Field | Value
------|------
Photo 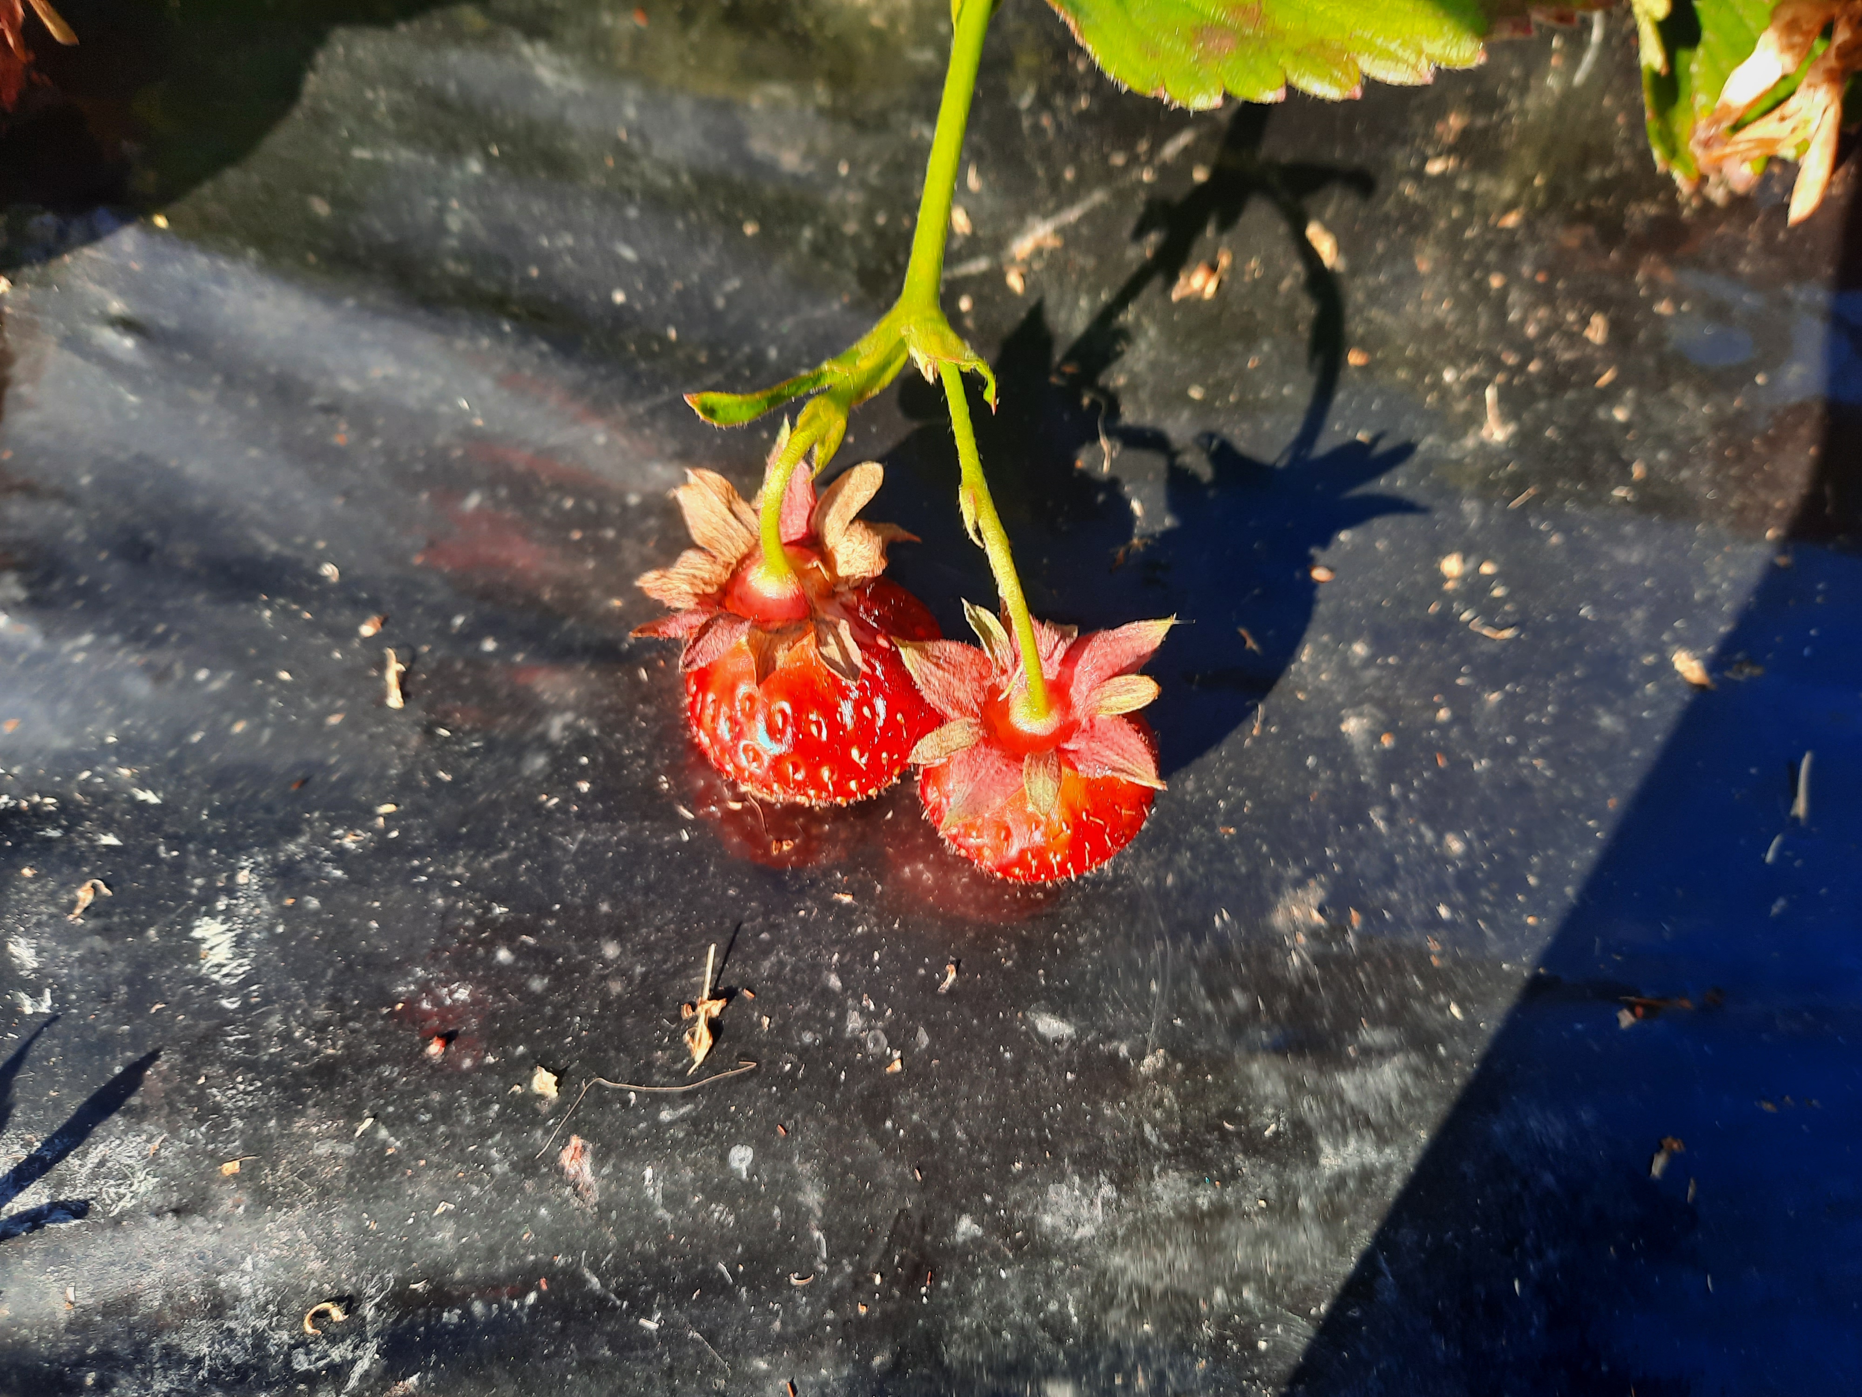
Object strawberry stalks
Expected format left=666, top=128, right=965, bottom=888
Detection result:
left=916, top=366, right=1048, bottom=736
left=729, top=395, right=873, bottom=609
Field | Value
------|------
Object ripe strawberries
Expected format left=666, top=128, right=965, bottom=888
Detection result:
left=684, top=556, right=950, bottom=803
left=926, top=662, right=1137, bottom=872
